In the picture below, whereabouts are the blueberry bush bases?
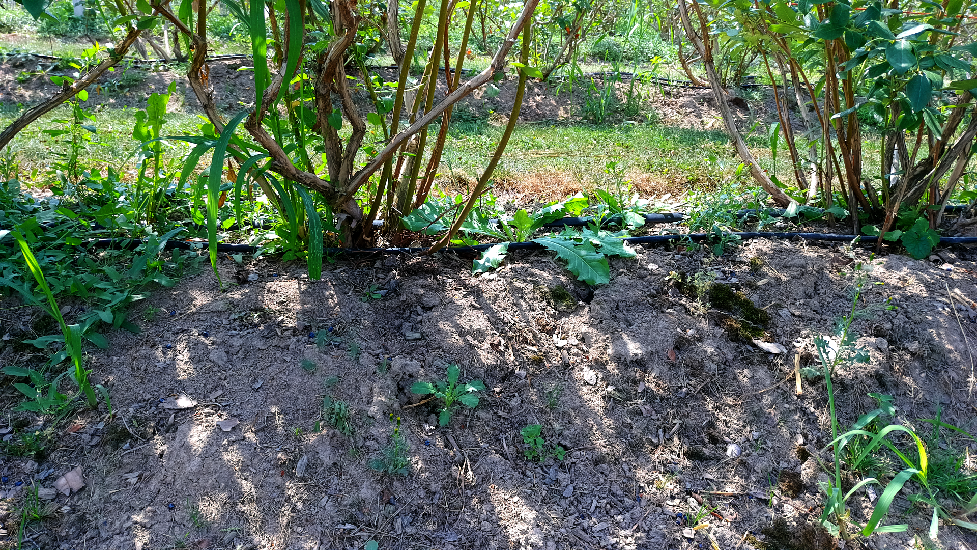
[230,129,505,296]
[734,128,977,282]
[682,53,760,104]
